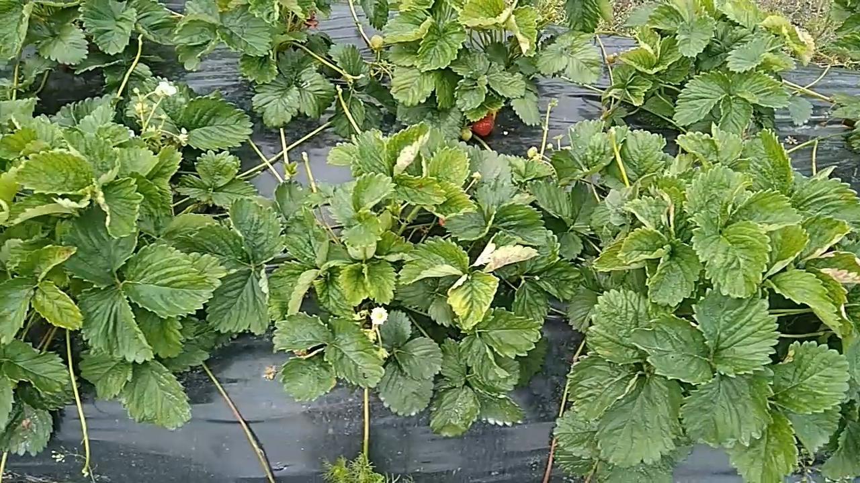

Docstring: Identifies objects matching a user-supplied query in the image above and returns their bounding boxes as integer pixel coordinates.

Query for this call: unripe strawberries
[461,130,472,142]
[367,34,386,56]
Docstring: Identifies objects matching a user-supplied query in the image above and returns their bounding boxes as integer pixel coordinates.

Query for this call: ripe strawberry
[473,116,498,136]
